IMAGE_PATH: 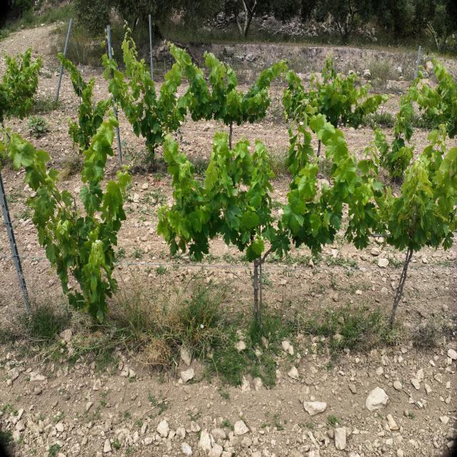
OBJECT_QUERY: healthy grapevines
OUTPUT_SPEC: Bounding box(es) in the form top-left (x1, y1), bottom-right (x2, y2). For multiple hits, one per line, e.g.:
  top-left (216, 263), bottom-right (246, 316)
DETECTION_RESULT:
top-left (154, 135), bottom-right (332, 337)
top-left (0, 114), bottom-right (141, 338)
top-left (331, 128), bottom-right (457, 345)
